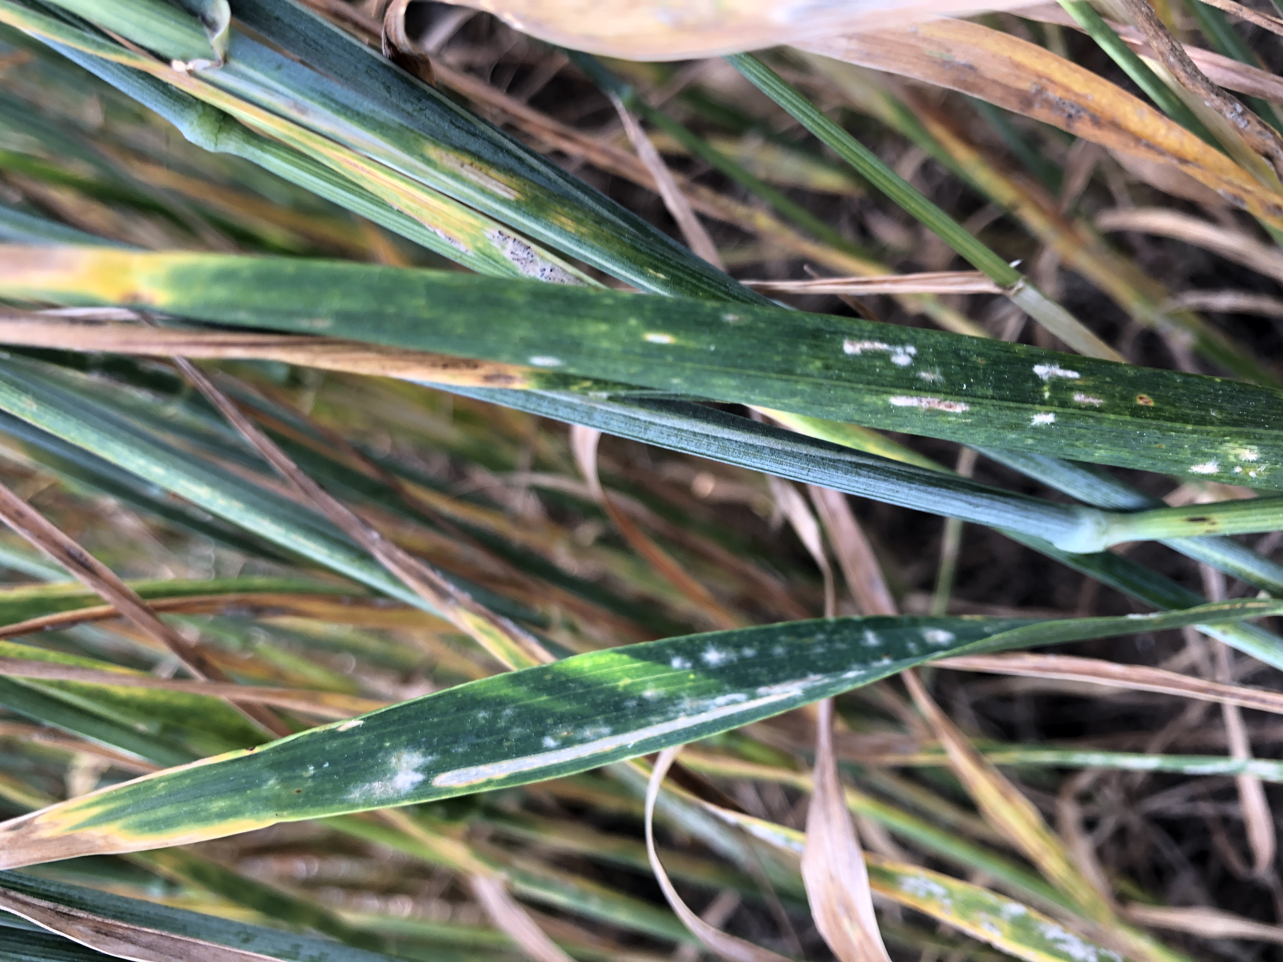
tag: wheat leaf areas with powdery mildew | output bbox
[308,594,1021,848]
[459,226,604,297]
[377,244,1267,507]
[858,848,1127,962]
